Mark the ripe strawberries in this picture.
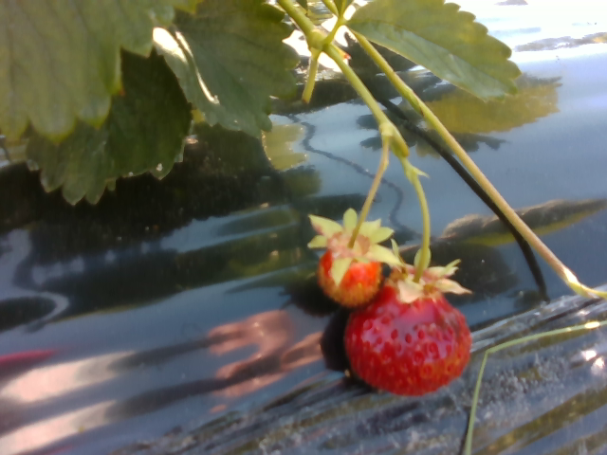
[318,231,388,302]
[347,274,473,388]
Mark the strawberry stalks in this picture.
[408,183,439,308]
[340,180,379,260]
